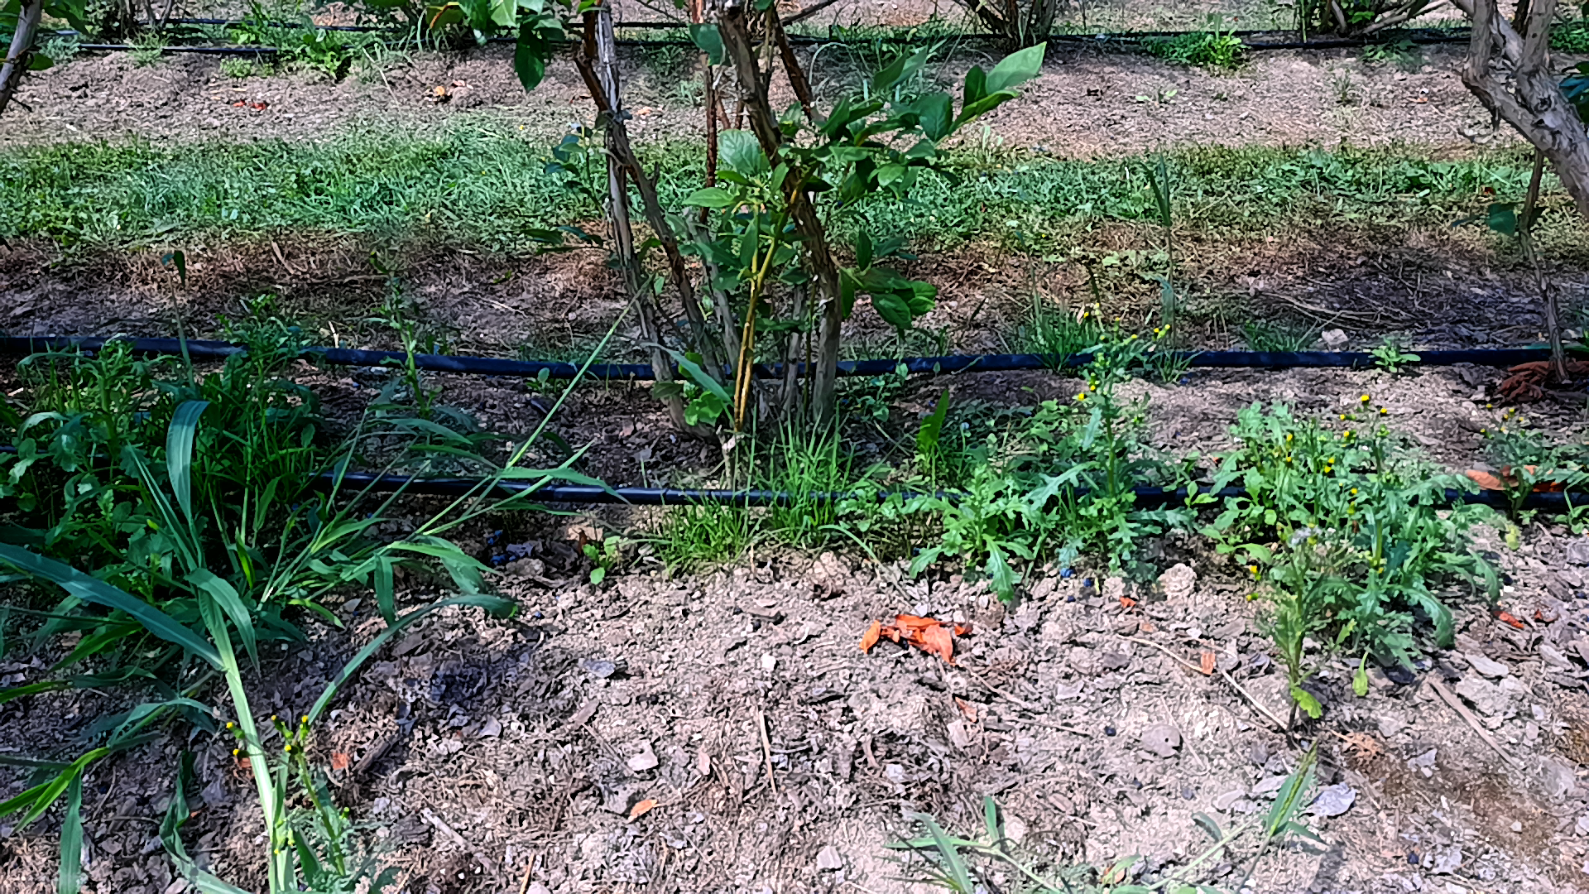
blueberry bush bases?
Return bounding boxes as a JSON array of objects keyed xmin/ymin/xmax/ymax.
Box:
[
  {"xmin": 390, "ymin": 4, "xmax": 506, "ymax": 61},
  {"xmin": 968, "ymin": 2, "xmax": 1076, "ymax": 67},
  {"xmin": 1292, "ymin": 1, "xmax": 1407, "ymax": 58},
  {"xmin": 72, "ymin": 0, "xmax": 188, "ymax": 56},
  {"xmin": 598, "ymin": 252, "xmax": 874, "ymax": 565}
]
